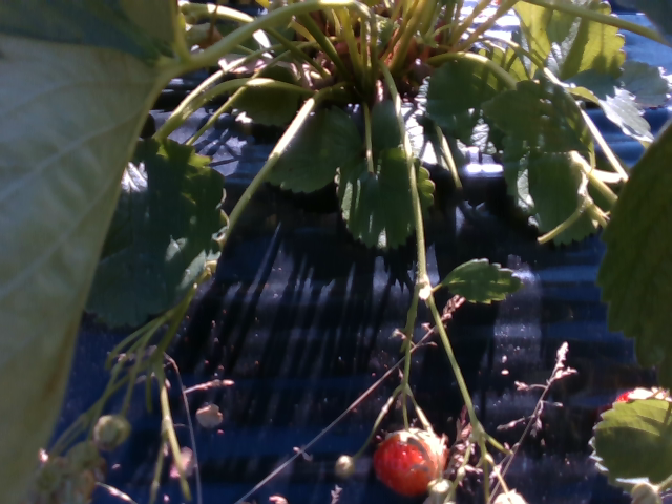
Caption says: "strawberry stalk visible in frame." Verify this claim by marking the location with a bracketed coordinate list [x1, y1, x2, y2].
[398, 393, 416, 451]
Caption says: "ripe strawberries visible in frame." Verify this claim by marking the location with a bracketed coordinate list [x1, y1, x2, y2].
[608, 381, 672, 446]
[377, 425, 447, 497]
